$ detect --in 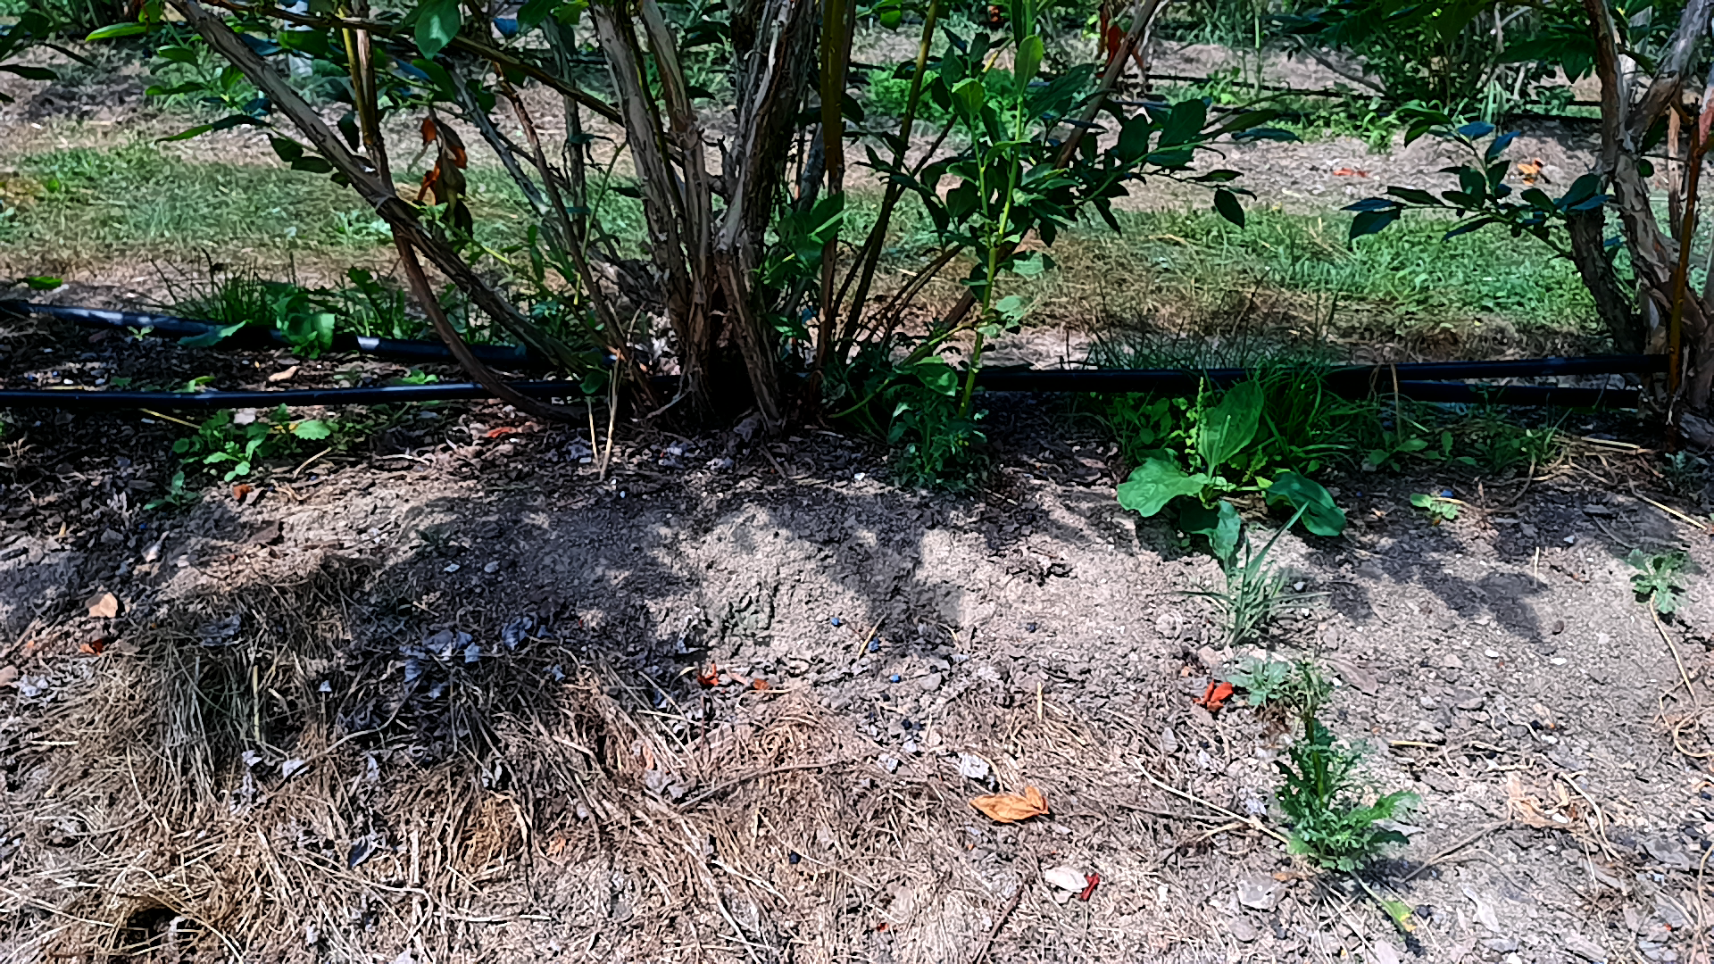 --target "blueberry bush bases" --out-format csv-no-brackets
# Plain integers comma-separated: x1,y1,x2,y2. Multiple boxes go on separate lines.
1572,189,1714,492
439,183,1000,498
